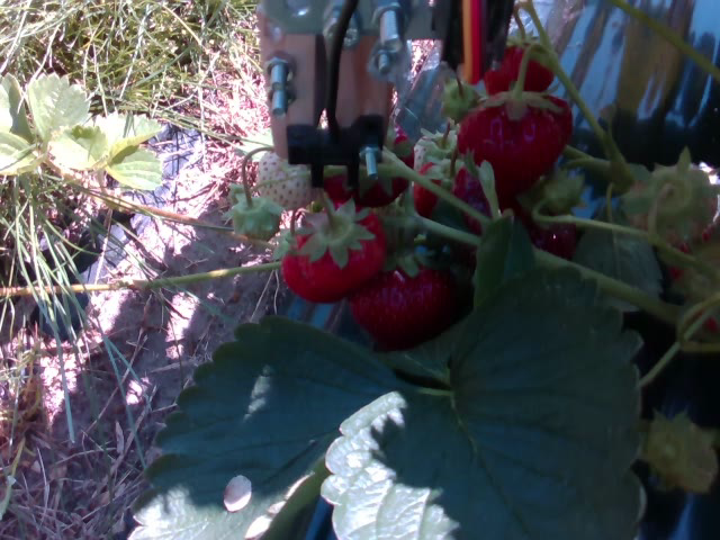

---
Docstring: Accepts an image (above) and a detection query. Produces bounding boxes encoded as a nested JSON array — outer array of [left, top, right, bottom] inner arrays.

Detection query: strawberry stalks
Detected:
[[494, 41, 532, 128], [314, 185, 358, 249]]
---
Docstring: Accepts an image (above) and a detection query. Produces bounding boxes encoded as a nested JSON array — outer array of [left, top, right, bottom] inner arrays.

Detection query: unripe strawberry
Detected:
[[249, 149, 313, 203]]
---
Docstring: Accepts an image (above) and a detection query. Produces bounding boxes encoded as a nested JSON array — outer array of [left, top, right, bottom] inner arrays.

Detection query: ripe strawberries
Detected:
[[464, 98, 582, 171], [358, 257, 459, 340], [479, 37, 559, 96], [293, 206, 385, 290]]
